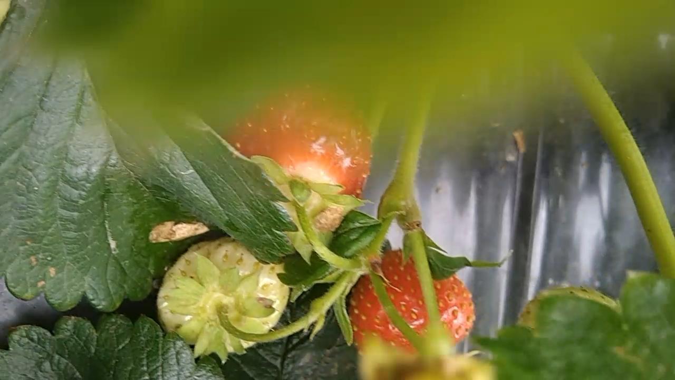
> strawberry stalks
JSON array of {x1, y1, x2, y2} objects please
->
[
  {"x1": 208, "y1": 296, "x2": 303, "y2": 344},
  {"x1": 271, "y1": 162, "x2": 360, "y2": 272}
]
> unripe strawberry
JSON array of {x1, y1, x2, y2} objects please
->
[{"x1": 147, "y1": 238, "x2": 295, "y2": 358}]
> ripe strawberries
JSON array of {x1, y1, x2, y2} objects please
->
[
  {"x1": 344, "y1": 242, "x2": 478, "y2": 355},
  {"x1": 216, "y1": 71, "x2": 370, "y2": 204}
]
